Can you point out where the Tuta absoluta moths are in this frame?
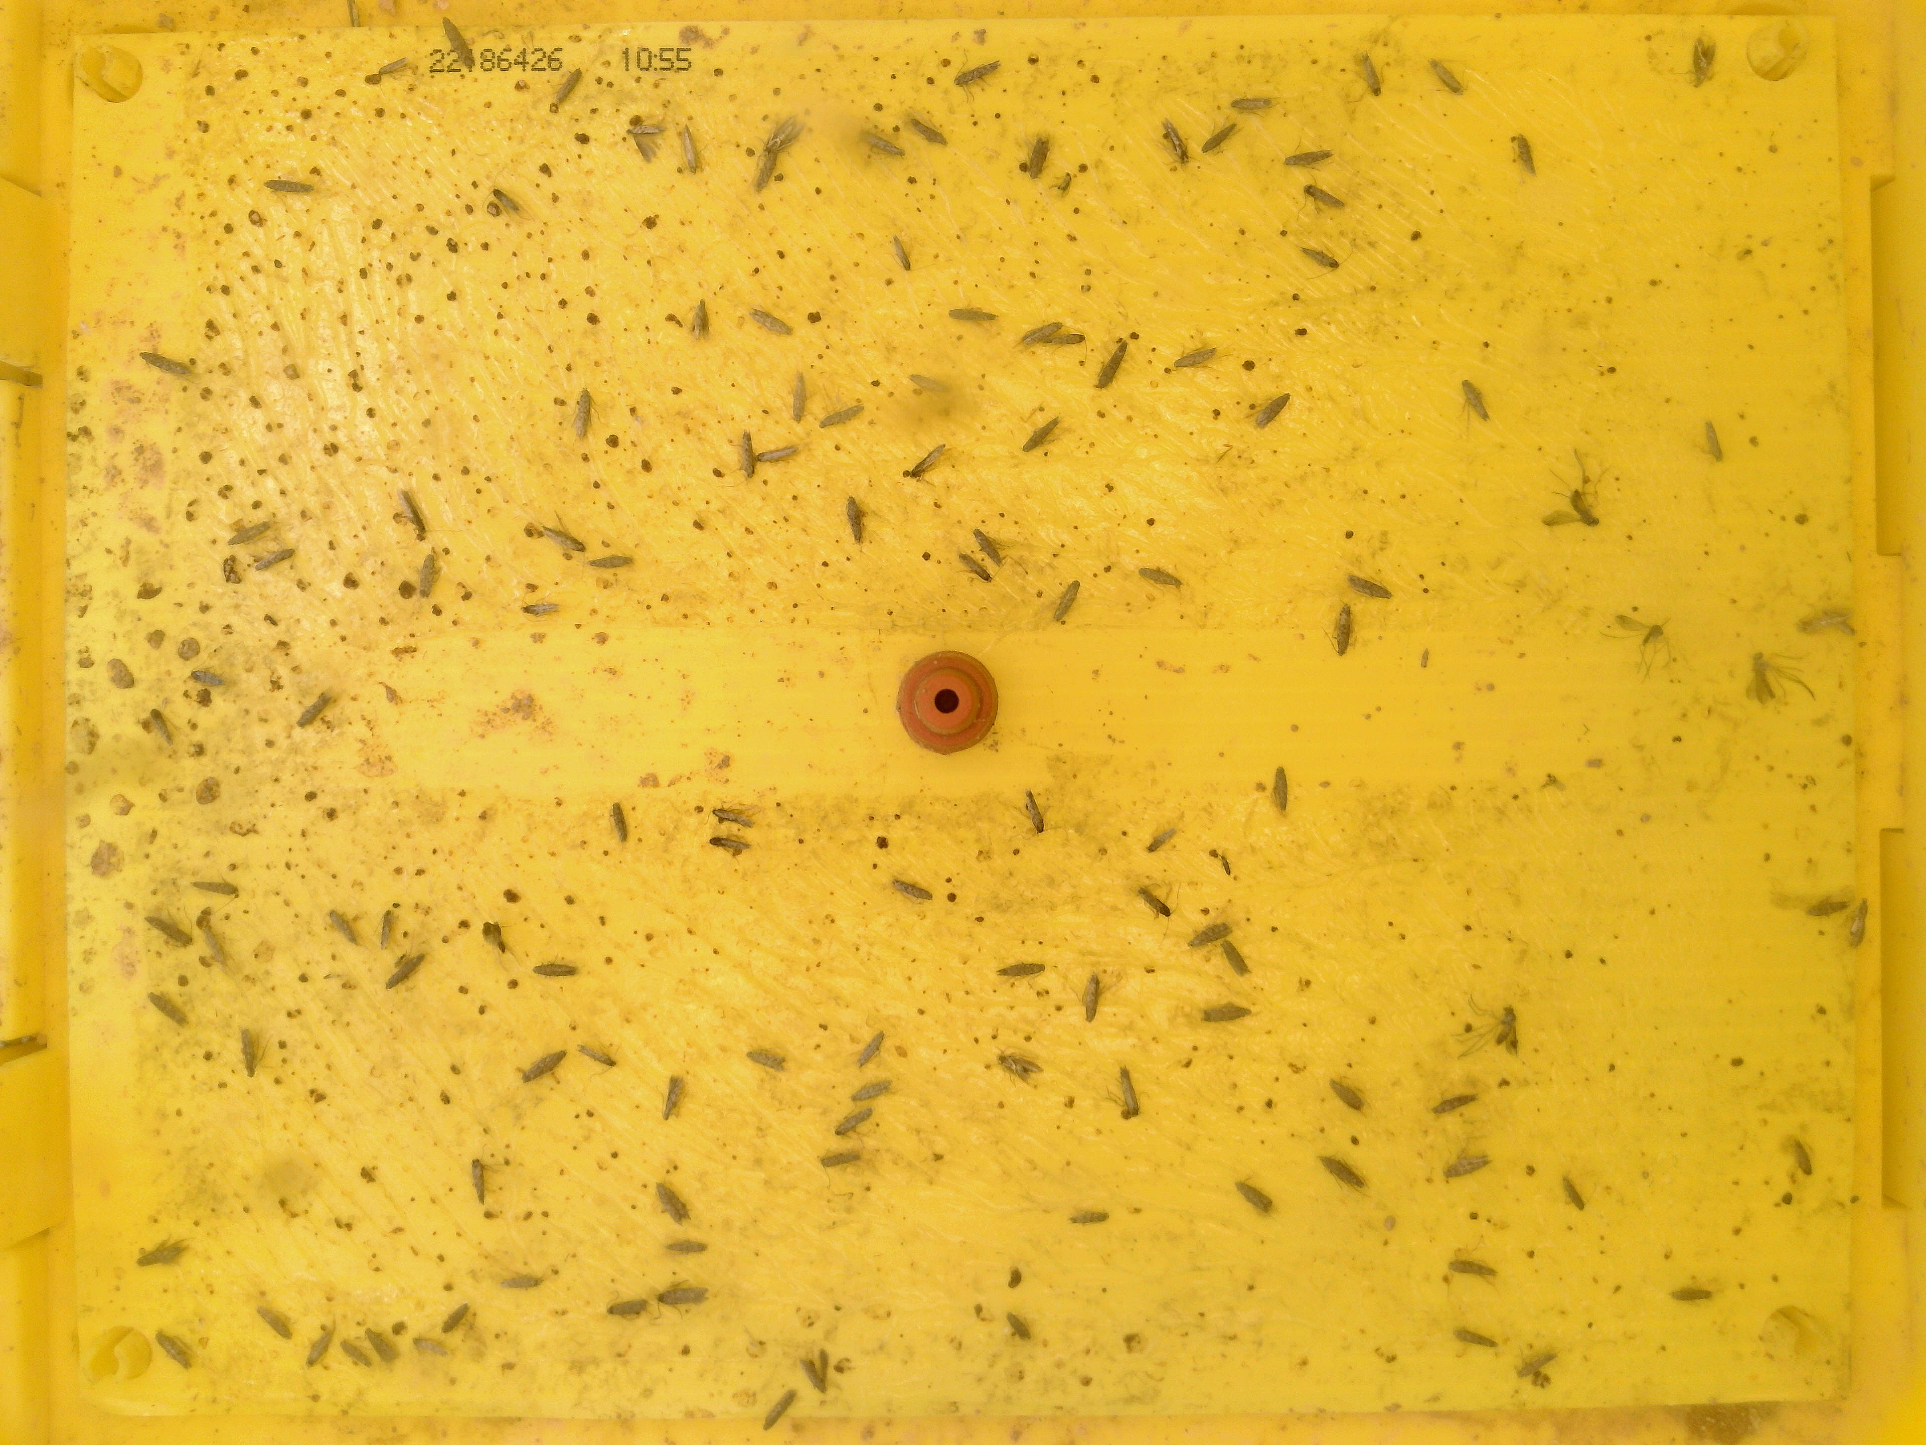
[1324,1154,1369,1193]
[489,921,511,967]
[743,136,788,189]
[708,835,756,855]
[678,121,703,171]
[244,1287,276,1333]
[860,1027,888,1070]
[138,977,186,1023]
[1460,376,1488,424]
[1029,130,1054,184]
[1565,1170,1585,1210]
[588,552,634,571]
[955,549,993,582]
[152,1328,200,1370]
[302,1322,336,1366]
[1517,132,1534,178]
[1687,35,1718,83]
[665,1070,686,1119]
[889,876,923,911]
[892,231,913,270]
[1800,889,1850,922]
[1095,332,1120,391]
[411,555,441,603]
[1258,387,1290,428]
[492,184,523,219]
[903,104,944,142]
[1197,1003,1255,1027]
[954,66,1003,102]
[244,515,292,539]
[1330,1074,1365,1111]
[1171,336,1221,373]
[327,907,361,946]
[820,385,860,433]
[434,1303,481,1332]
[1204,116,1240,155]
[1434,1086,1486,1116]
[368,54,411,85]
[834,1106,875,1136]
[973,525,1010,561]
[574,386,594,437]
[740,301,784,331]
[541,520,586,552]
[197,878,246,902]
[1024,786,1048,832]
[1454,1323,1506,1356]
[766,1386,799,1434]
[908,371,948,398]
[203,927,233,970]
[1305,182,1345,213]
[791,368,811,420]
[1354,51,1383,96]
[1018,322,1086,348]
[1232,1175,1280,1212]
[364,1326,395,1361]
[1164,117,1191,165]
[267,172,311,199]
[1021,416,1064,453]
[1113,1065,1139,1116]
[150,703,173,749]
[1520,1339,1552,1375]
[747,1044,793,1073]
[142,355,198,382]
[1076,976,1110,1025]
[1335,606,1366,655]
[398,488,428,533]
[1180,921,1235,940]
[613,799,632,847]
[653,1187,698,1219]
[298,691,340,726]
[738,430,757,486]
[1446,1256,1501,1287]
[801,1350,834,1395]
[241,1023,272,1064]
[754,441,799,464]
[995,962,1044,982]
[340,1333,371,1370]
[443,21,481,68]
[1131,557,1179,598]
[1228,946,1256,977]
[536,960,580,985]
[623,120,664,154]
[1699,412,1727,458]
[1444,1139,1492,1179]
[522,597,565,614]
[658,1278,708,1313]
[517,1051,560,1095]
[1672,1286,1715,1303]
[393,939,429,987]
[845,1083,896,1105]
[493,1272,537,1291]
[129,1237,190,1267]
[1279,142,1334,171]
[1069,1208,1111,1230]
[139,912,191,945]
[813,1145,869,1170]
[687,297,710,339]
[711,800,758,827]
[1788,1136,1821,1183]
[1346,570,1392,599]
[1263,779,1289,826]
[187,666,228,681]
[471,1154,497,1204]
[1145,821,1175,851]
[911,448,952,480]
[859,125,906,159]
[247,546,293,567]
[953,301,1001,330]
[658,1237,710,1251]
[1300,240,1340,268]
[1428,54,1466,95]
[576,1039,616,1067]
[604,1296,658,1321]
[540,67,581,99]
[1138,881,1174,917]
[1803,607,1852,633]
[1011,1308,1041,1352]
[997,1048,1042,1081]
[1050,577,1081,622]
